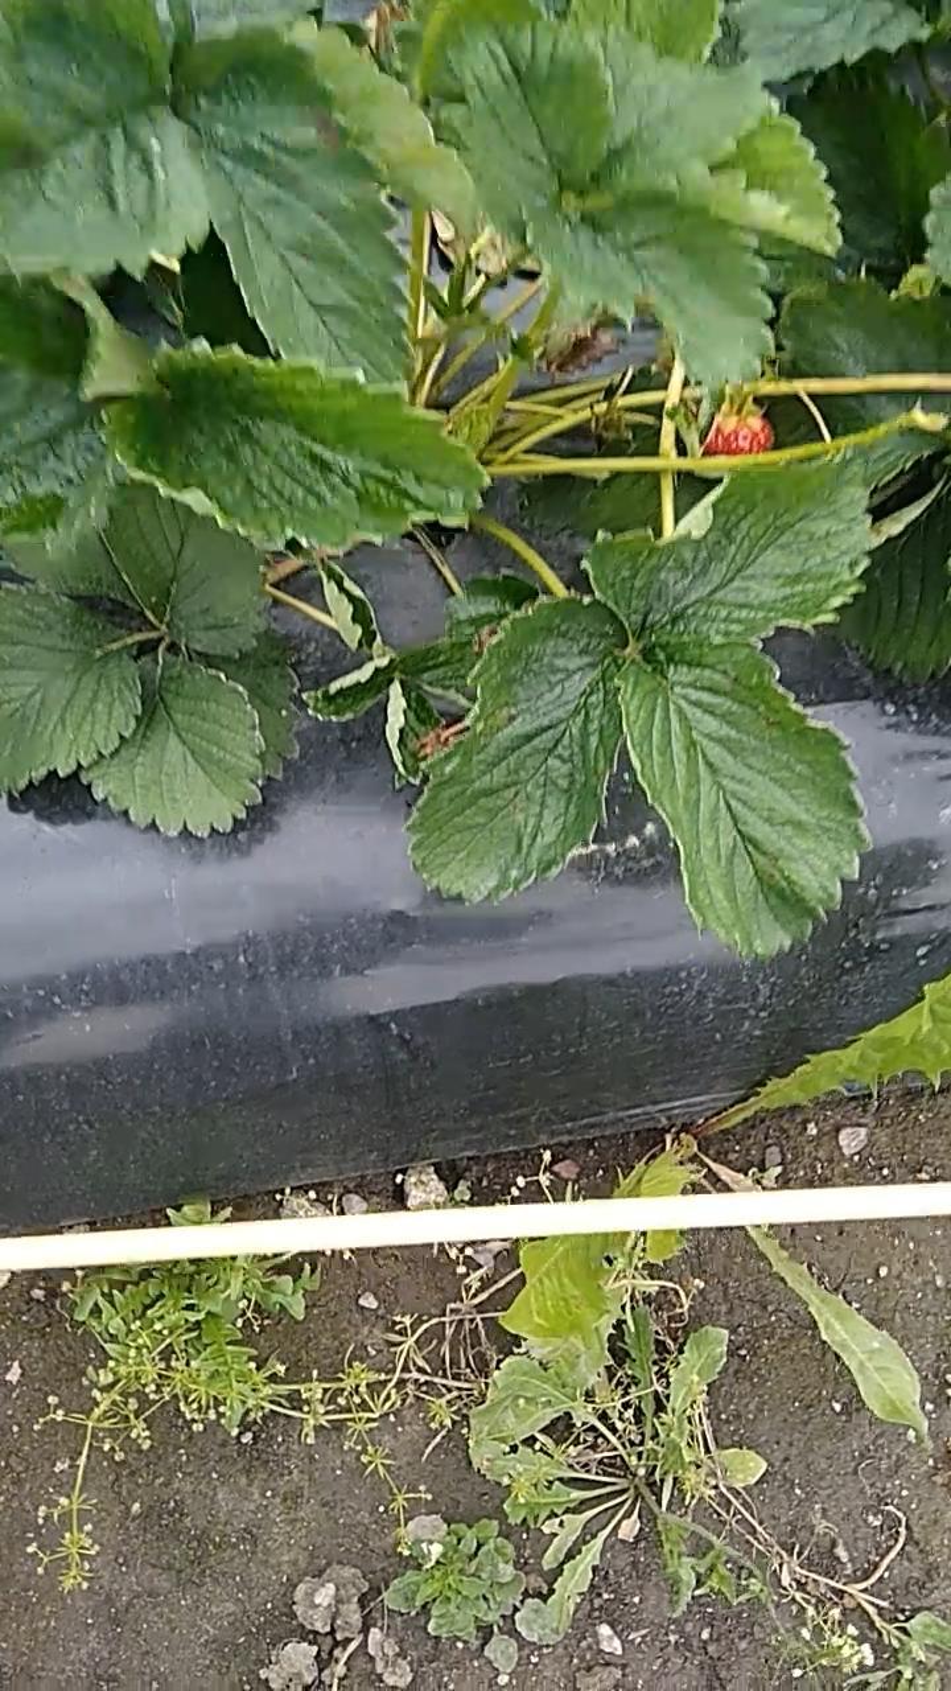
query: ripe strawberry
[694,398,784,494]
